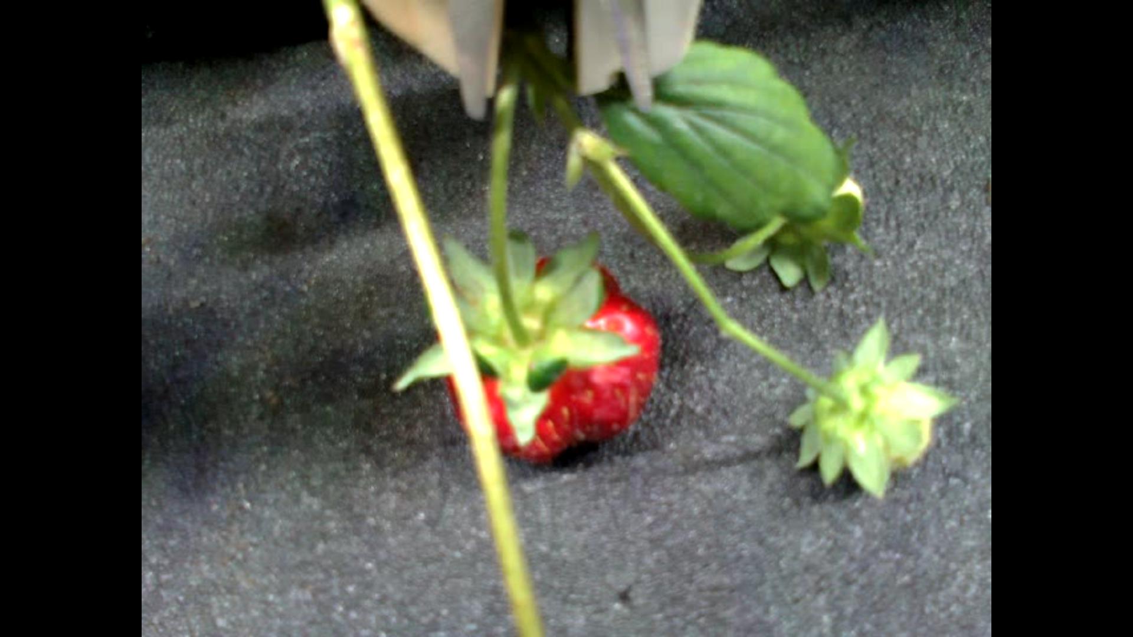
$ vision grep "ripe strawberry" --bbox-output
[440,249,689,467]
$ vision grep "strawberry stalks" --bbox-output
[478,59,538,367]
[733,331,860,412]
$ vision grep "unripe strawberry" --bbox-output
[811,352,935,482]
